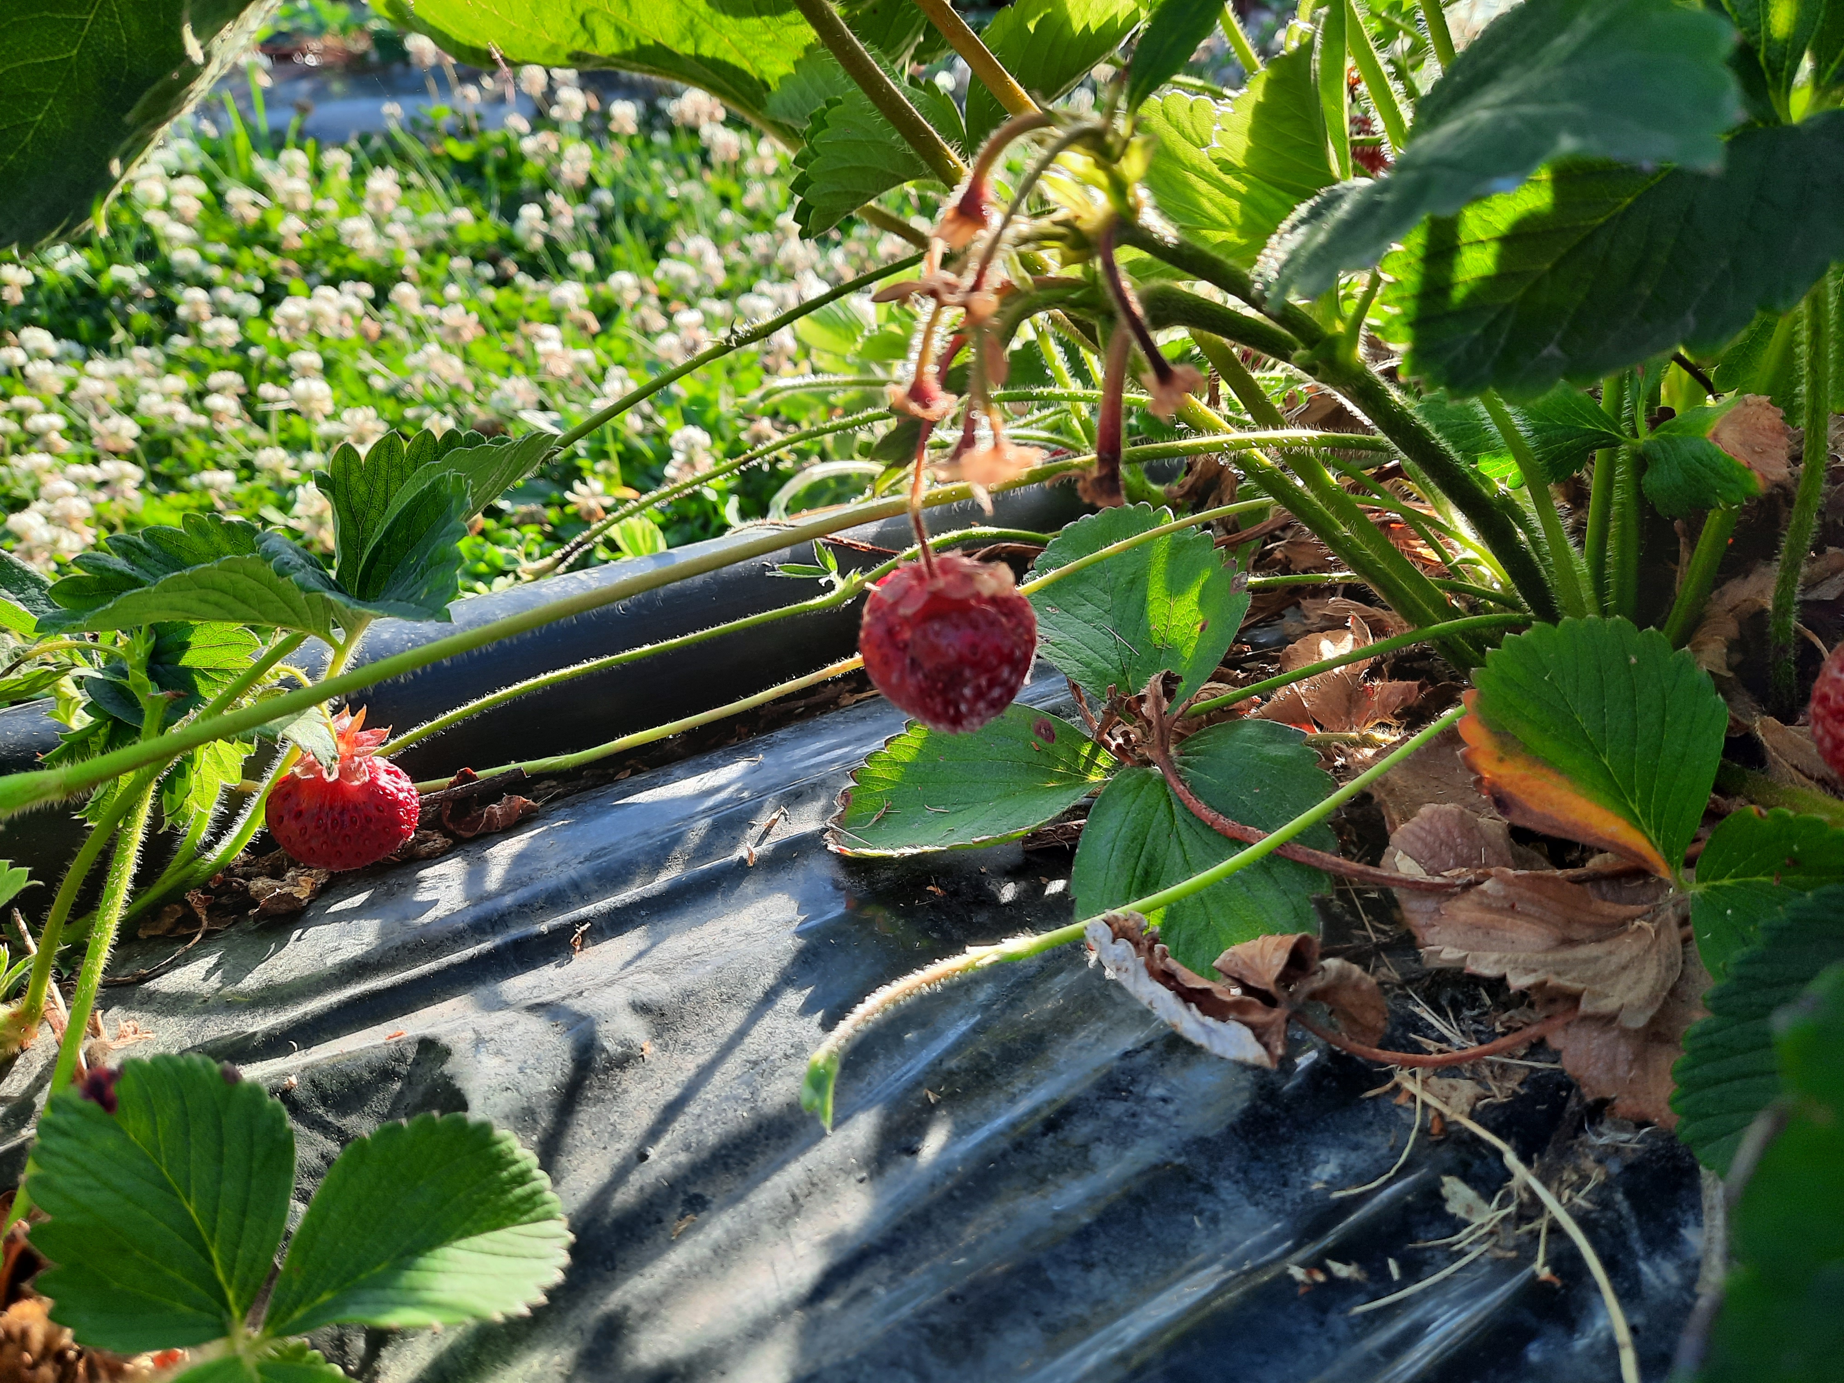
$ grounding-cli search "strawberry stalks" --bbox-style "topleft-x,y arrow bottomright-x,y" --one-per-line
297,673 -> 367,776
912,420 -> 963,596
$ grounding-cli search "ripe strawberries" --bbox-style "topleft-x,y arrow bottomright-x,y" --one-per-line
263,737 -> 411,873
866,557 -> 1031,727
